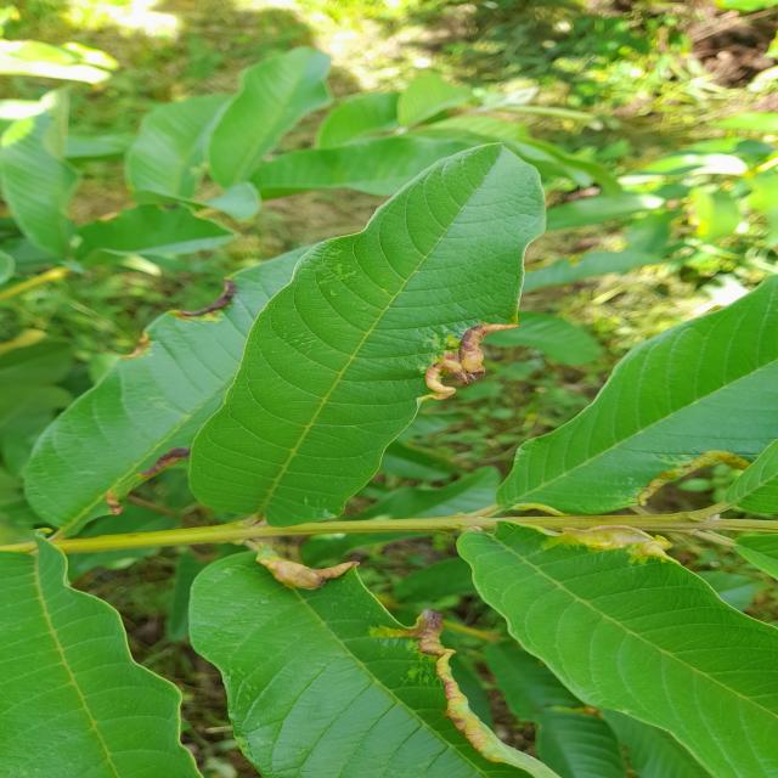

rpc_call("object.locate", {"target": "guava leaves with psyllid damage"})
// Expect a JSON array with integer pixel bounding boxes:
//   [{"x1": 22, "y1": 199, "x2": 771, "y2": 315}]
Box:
[
  {"x1": 159, "y1": 118, "x2": 555, "y2": 528},
  {"x1": 160, "y1": 557, "x2": 568, "y2": 778}
]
